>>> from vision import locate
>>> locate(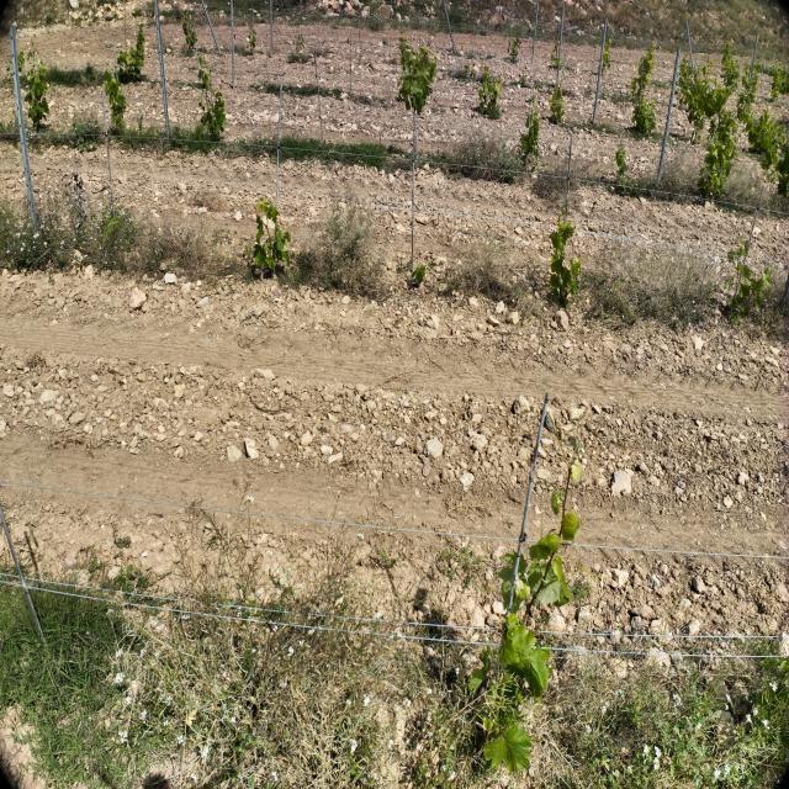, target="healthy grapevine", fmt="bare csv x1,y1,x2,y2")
460,429,587,777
